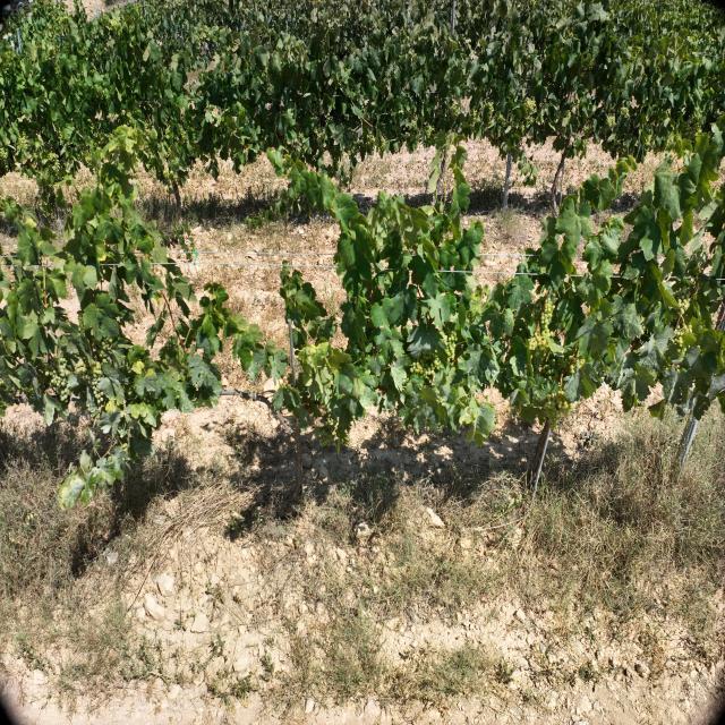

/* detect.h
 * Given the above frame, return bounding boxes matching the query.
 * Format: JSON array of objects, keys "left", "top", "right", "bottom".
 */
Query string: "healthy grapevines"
[
  {"left": 223, "top": 180, "right": 461, "bottom": 539},
  {"left": 467, "top": 170, "right": 725, "bottom": 521},
  {"left": 0, "top": 196, "right": 213, "bottom": 530}
]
